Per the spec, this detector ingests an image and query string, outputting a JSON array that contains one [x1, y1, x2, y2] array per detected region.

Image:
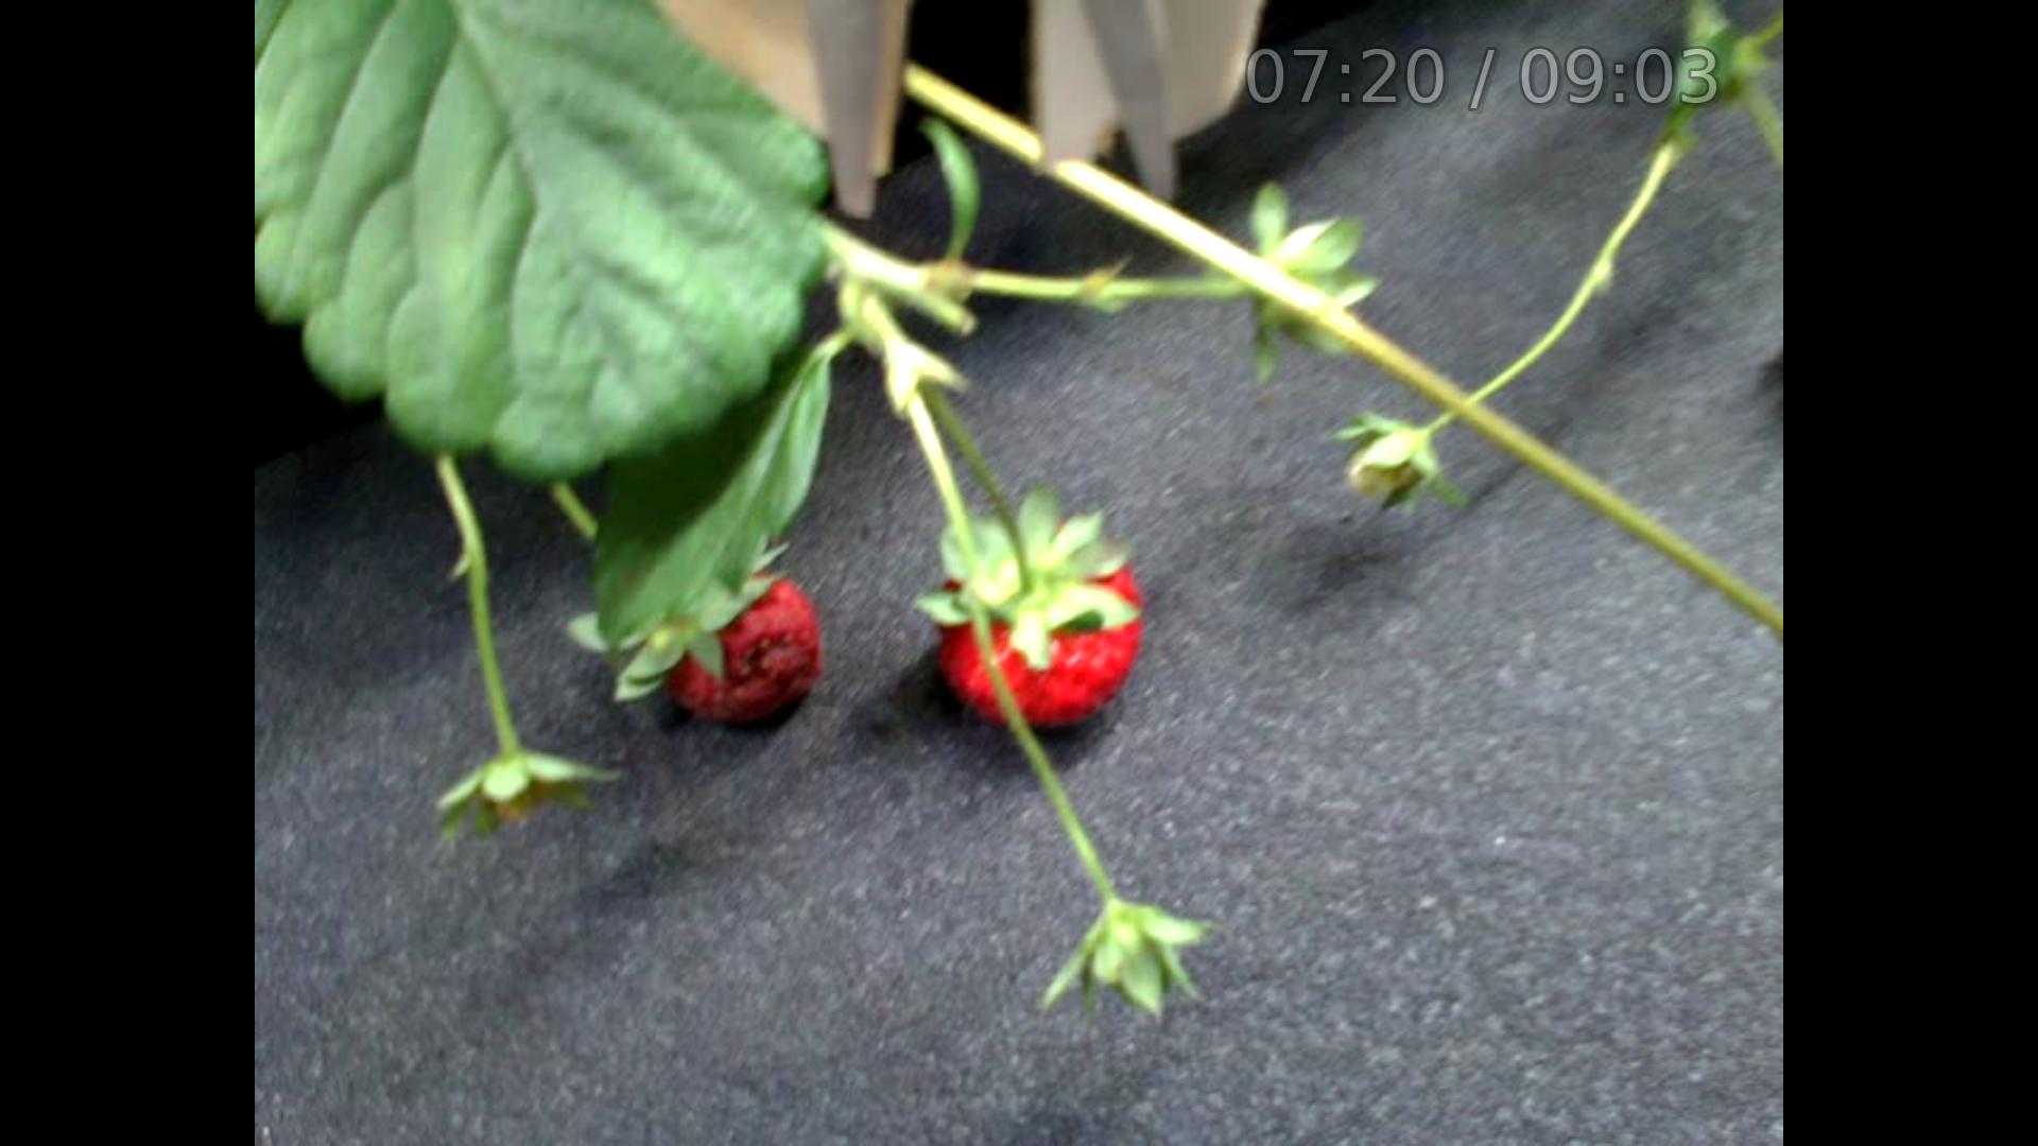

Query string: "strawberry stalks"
[[1406, 344, 1534, 433], [915, 370, 1090, 636], [1138, 236, 1296, 317], [454, 633, 538, 769], [1054, 793, 1136, 931]]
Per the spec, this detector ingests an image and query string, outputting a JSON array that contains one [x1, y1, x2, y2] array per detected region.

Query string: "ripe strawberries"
[[953, 542, 1155, 744], [628, 555, 845, 755]]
